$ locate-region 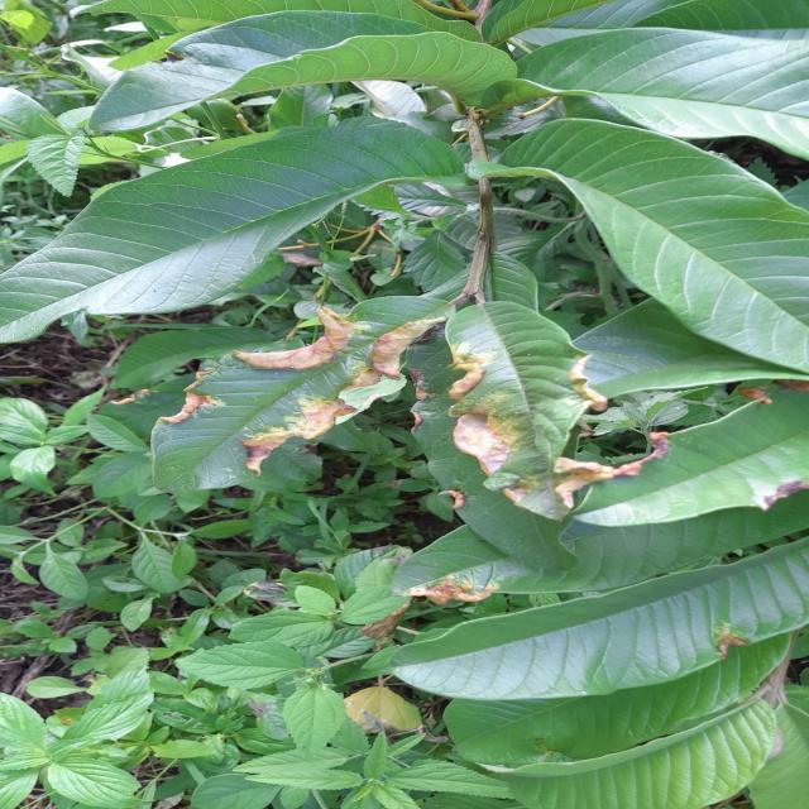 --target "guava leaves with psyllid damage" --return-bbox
[429,289,647,522]
[140,274,459,524]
